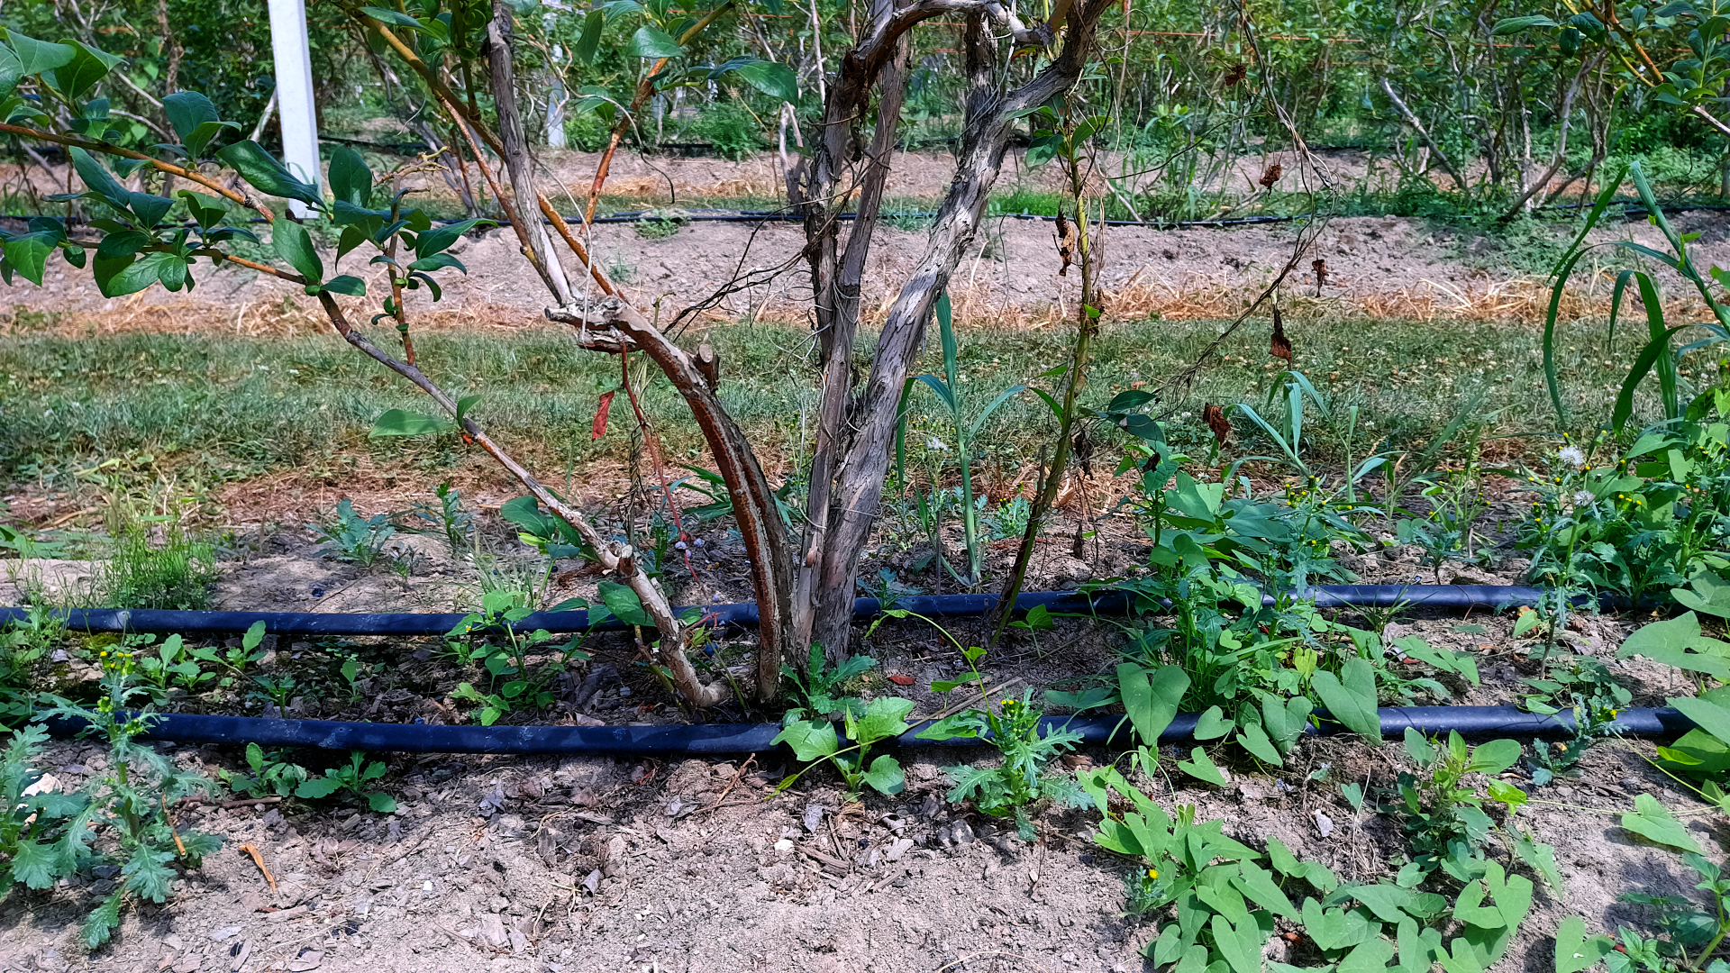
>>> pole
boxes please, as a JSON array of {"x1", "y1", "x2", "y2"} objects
[{"x1": 260, "y1": 2, "x2": 328, "y2": 228}]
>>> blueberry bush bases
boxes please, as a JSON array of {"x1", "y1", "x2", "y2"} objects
[
  {"x1": 1398, "y1": 130, "x2": 1607, "y2": 269},
  {"x1": 532, "y1": 407, "x2": 999, "y2": 822},
  {"x1": 1121, "y1": 180, "x2": 1264, "y2": 254}
]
